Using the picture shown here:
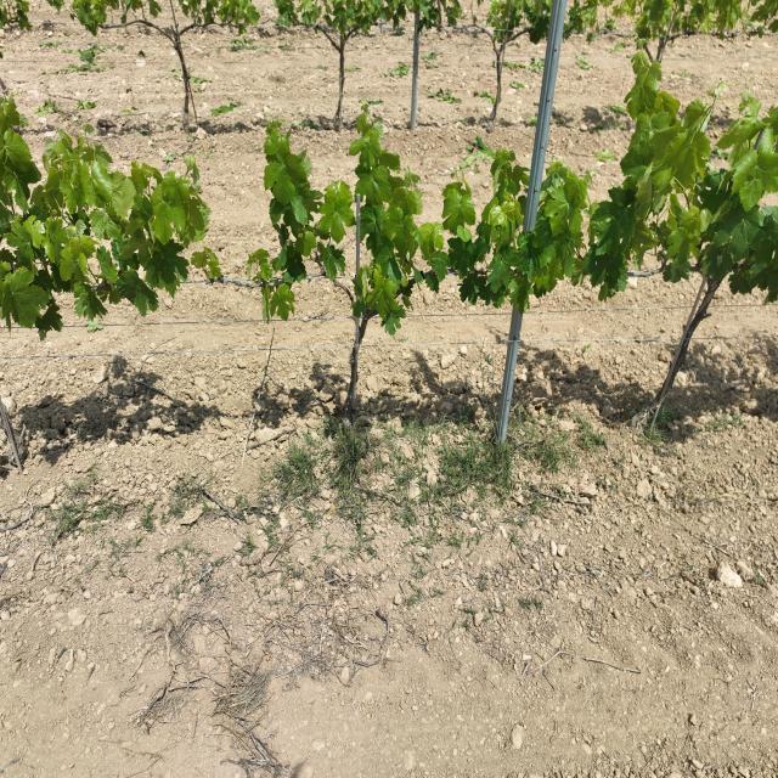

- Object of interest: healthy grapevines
[0,102,225,473]
[244,105,592,442]
[587,53,778,455]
